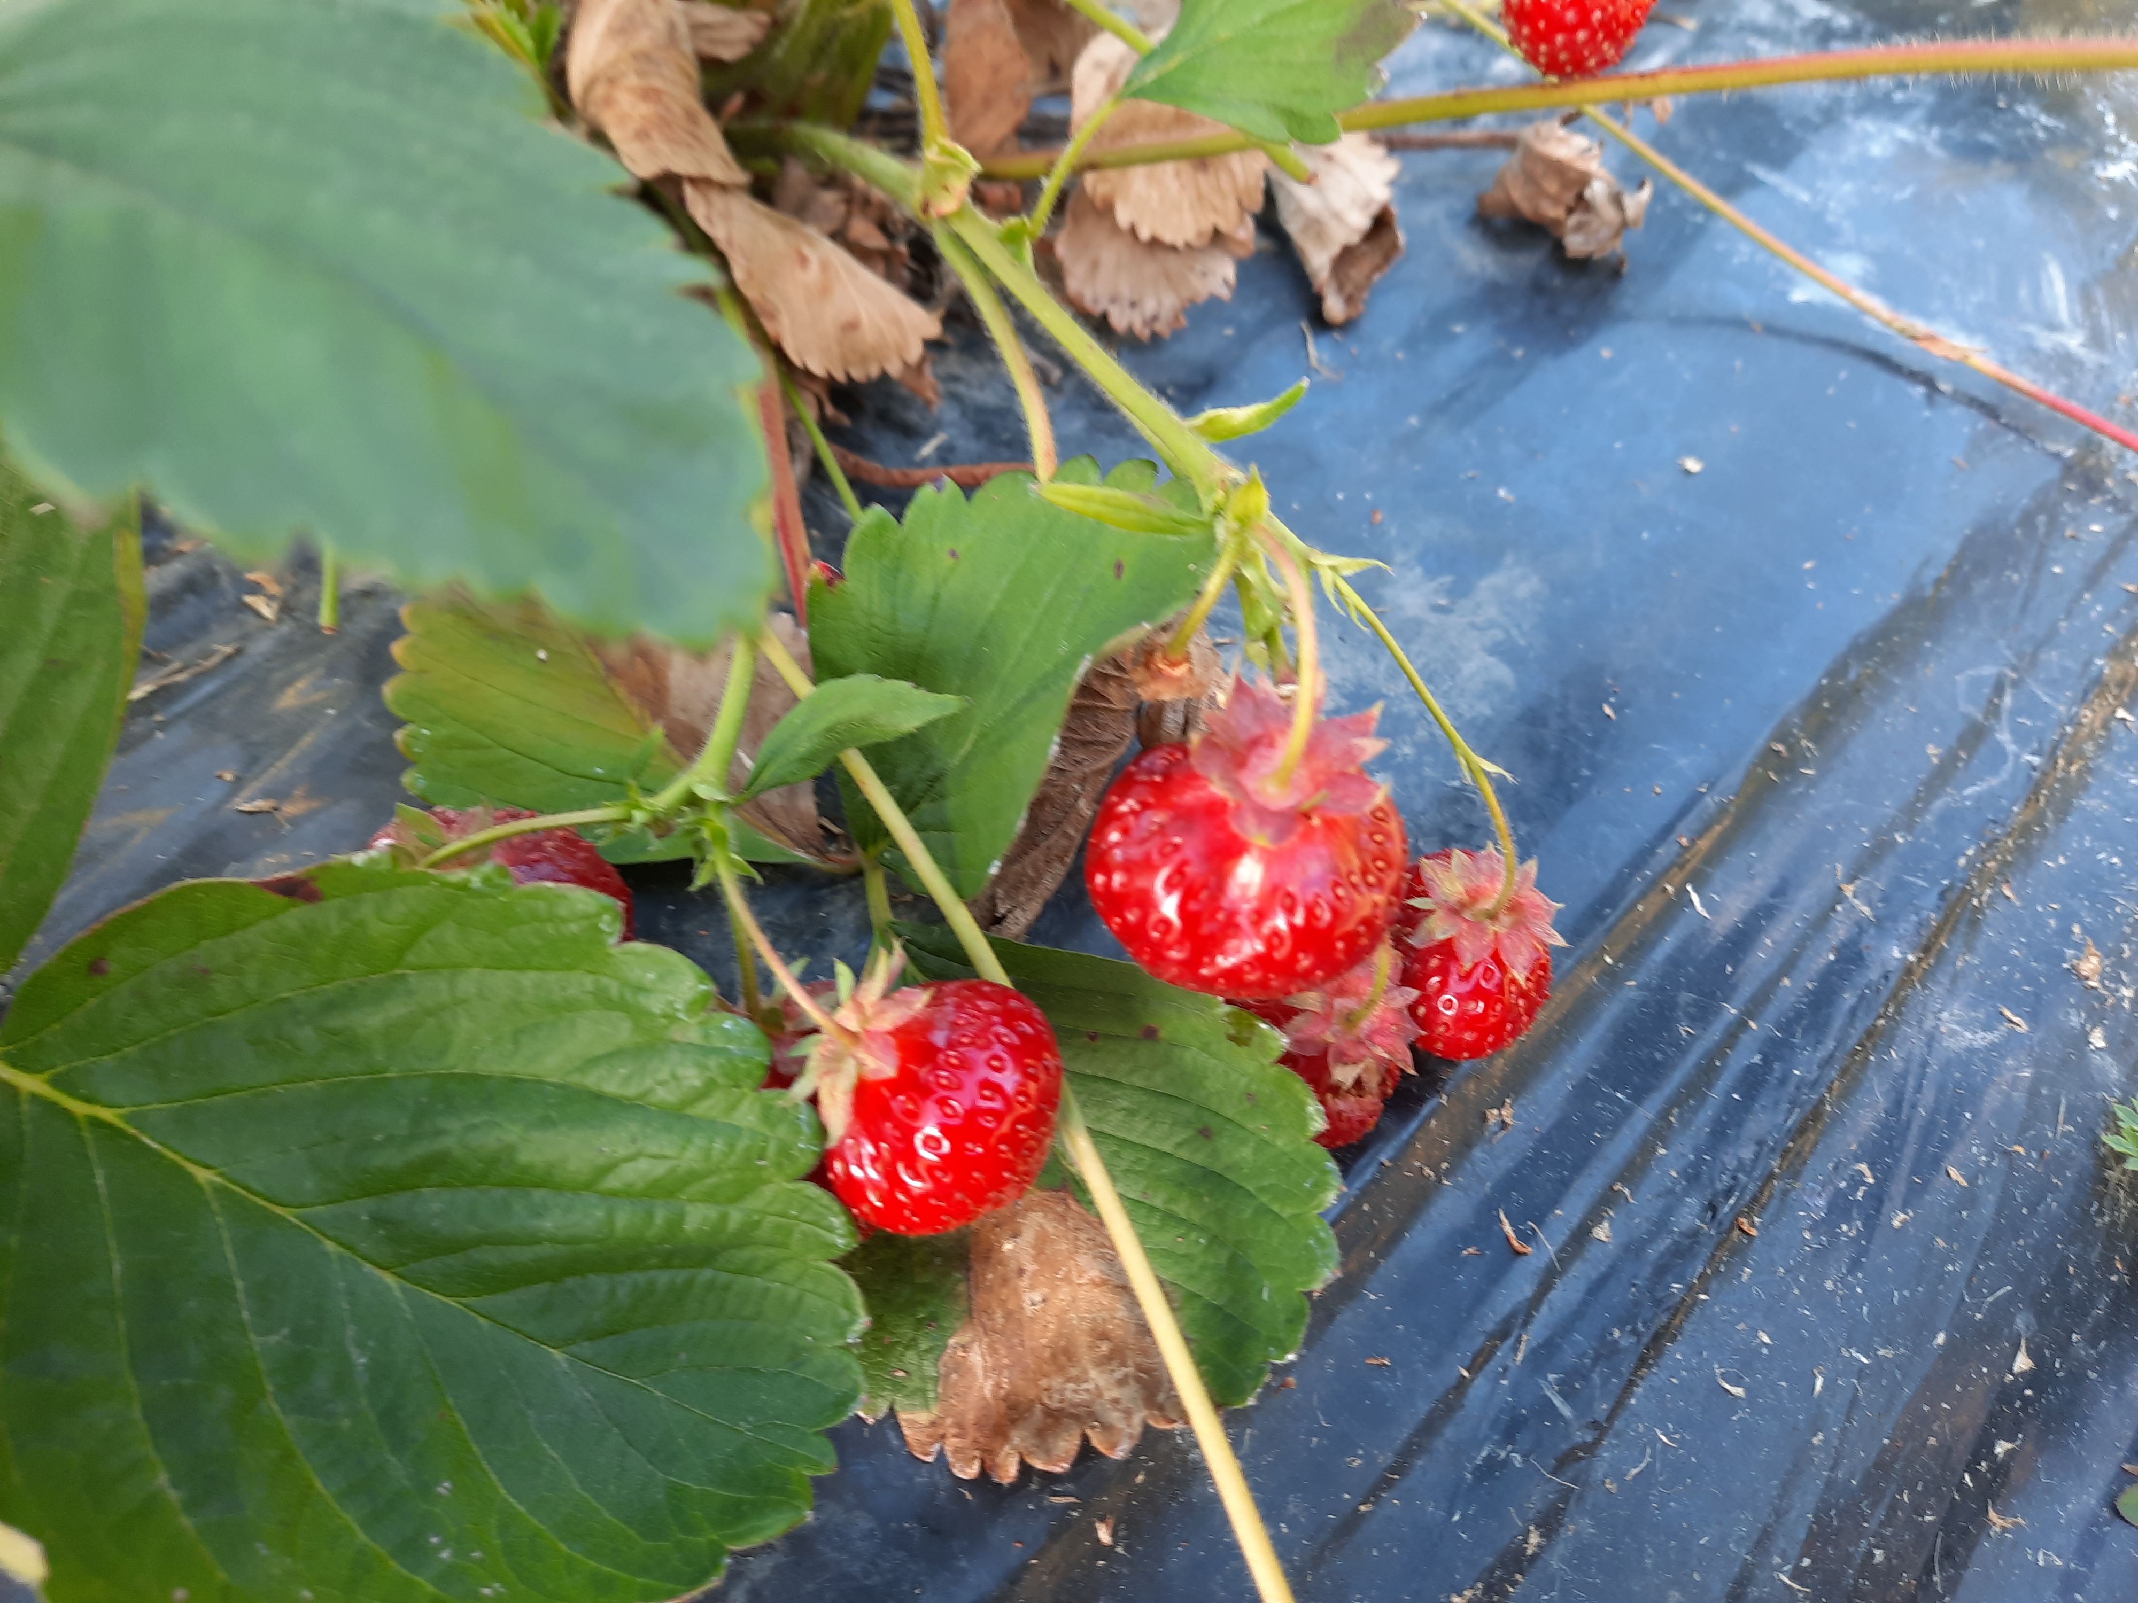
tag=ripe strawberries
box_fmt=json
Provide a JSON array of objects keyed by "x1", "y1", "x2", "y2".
[
  {"x1": 1386, "y1": 876, "x2": 1560, "y2": 1059},
  {"x1": 1093, "y1": 737, "x2": 1404, "y2": 1000},
  {"x1": 1500, "y1": 0, "x2": 1670, "y2": 75},
  {"x1": 811, "y1": 963, "x2": 1043, "y2": 1231}
]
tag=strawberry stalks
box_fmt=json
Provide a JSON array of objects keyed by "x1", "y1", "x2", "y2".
[
  {"x1": 1217, "y1": 538, "x2": 1321, "y2": 845},
  {"x1": 1402, "y1": 668, "x2": 1528, "y2": 937},
  {"x1": 703, "y1": 843, "x2": 913, "y2": 1073}
]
